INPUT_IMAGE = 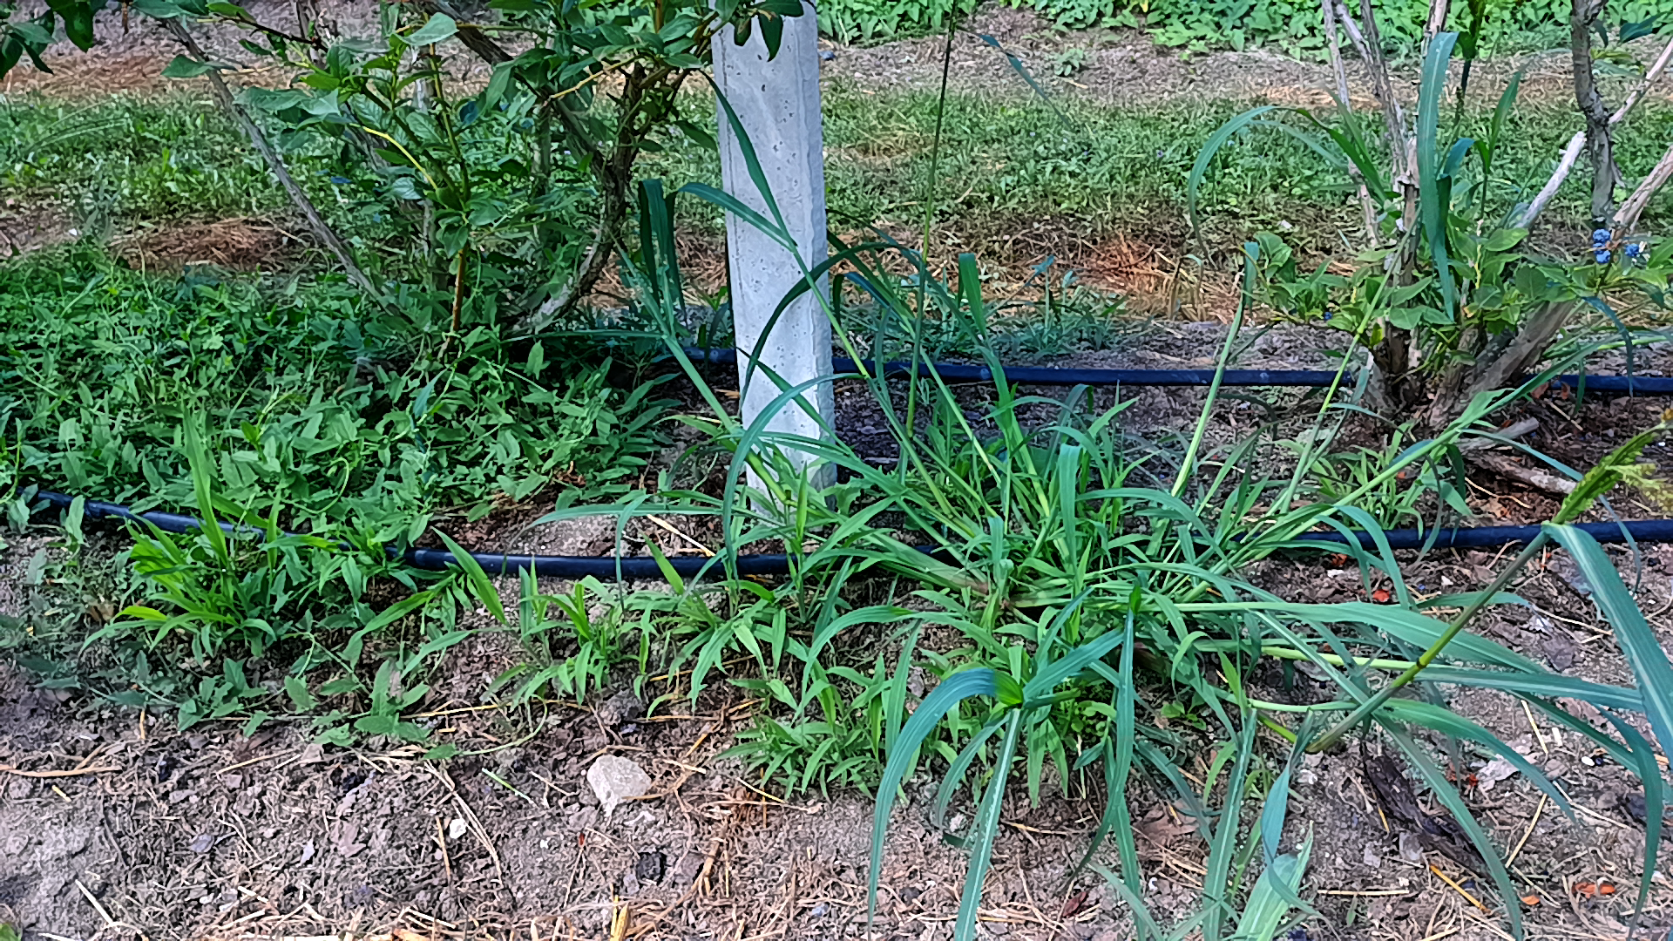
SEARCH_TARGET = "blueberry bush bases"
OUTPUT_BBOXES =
[246,113,652,477]
[1287,152,1637,555]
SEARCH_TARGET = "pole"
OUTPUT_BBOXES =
[701,3,875,510]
